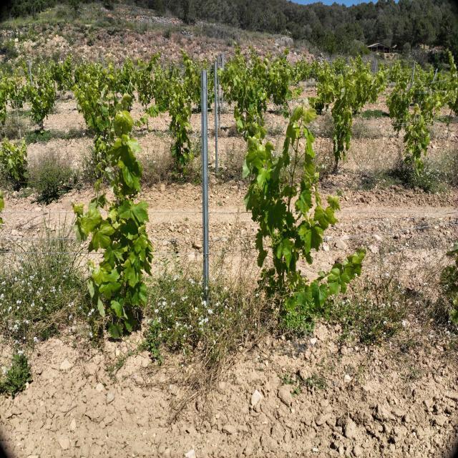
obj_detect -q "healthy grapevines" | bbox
[73,101,159,348]
[237,97,370,343]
